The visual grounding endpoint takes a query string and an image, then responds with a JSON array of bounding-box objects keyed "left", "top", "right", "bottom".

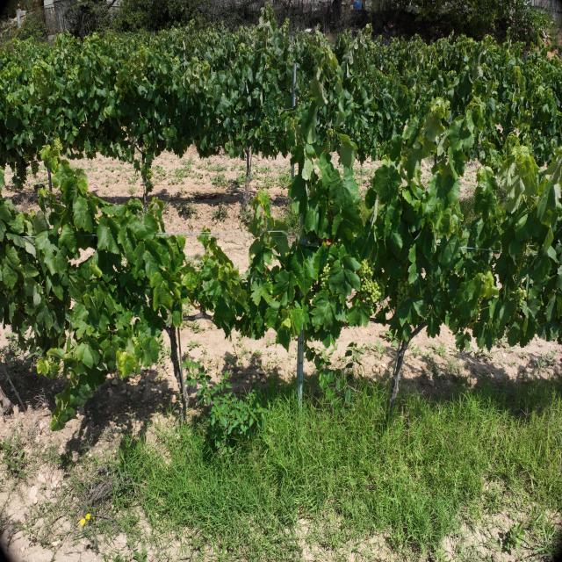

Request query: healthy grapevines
[
  {"left": 297, "top": 157, "right": 562, "bottom": 453},
  {"left": 0, "top": 173, "right": 285, "bottom": 453}
]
